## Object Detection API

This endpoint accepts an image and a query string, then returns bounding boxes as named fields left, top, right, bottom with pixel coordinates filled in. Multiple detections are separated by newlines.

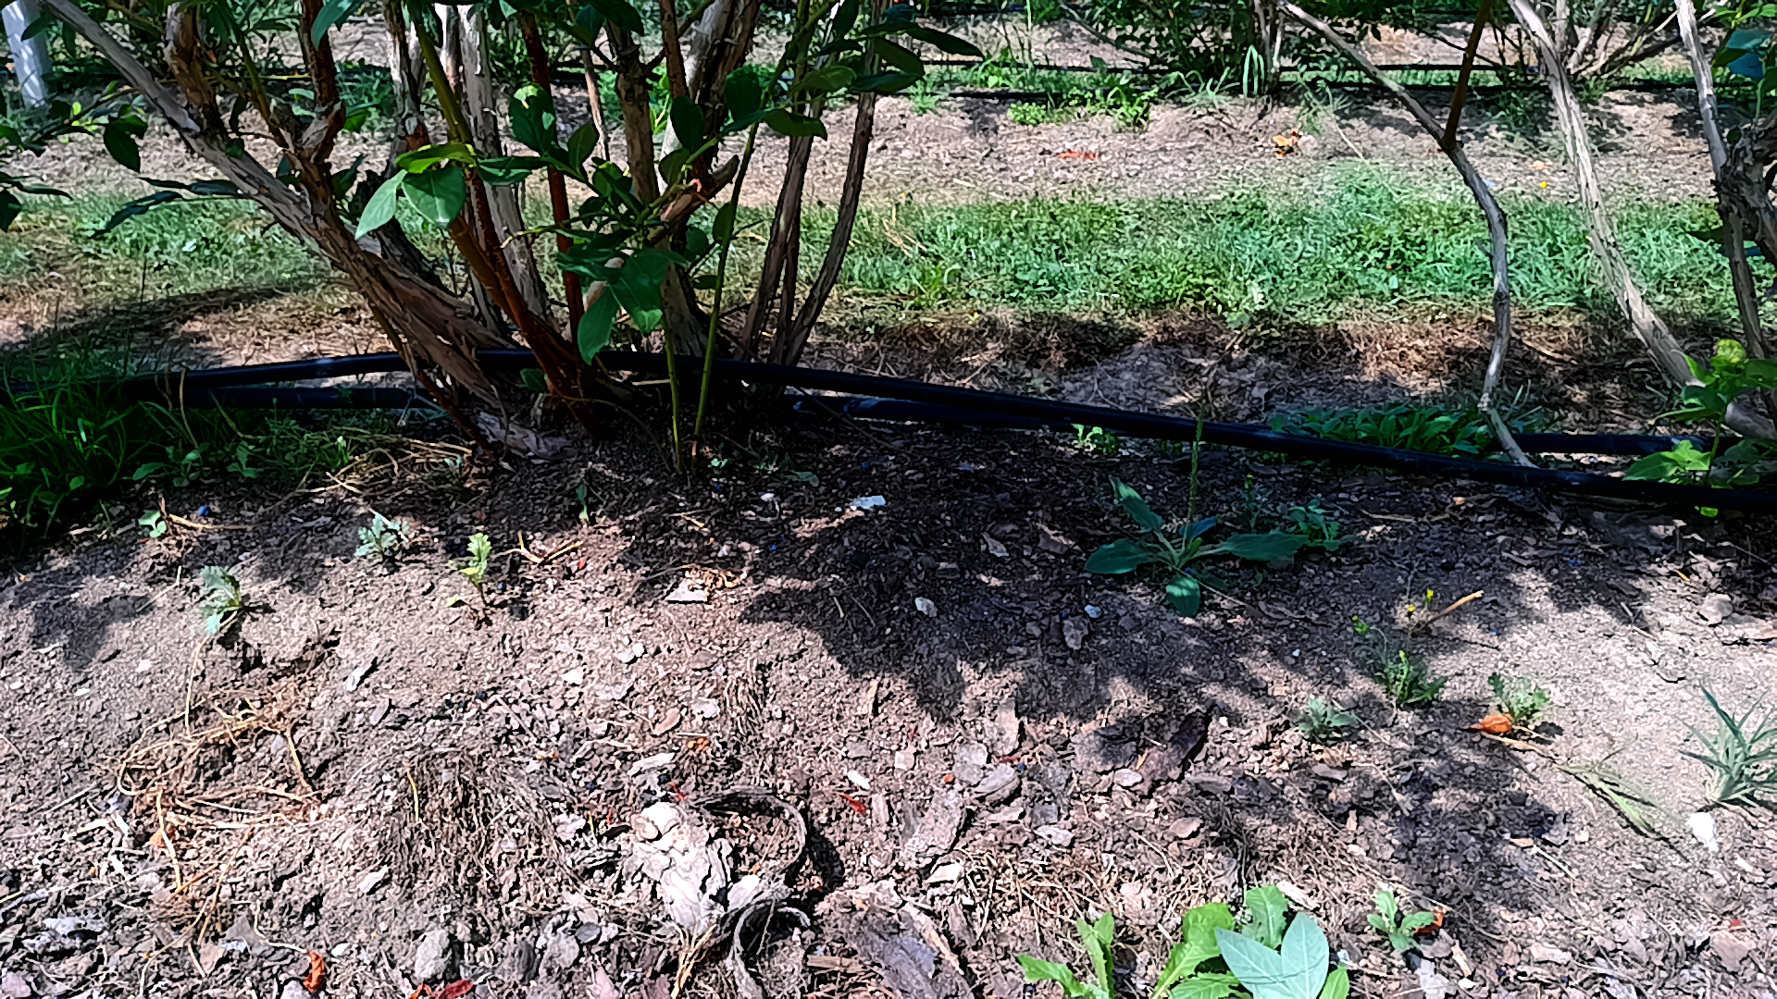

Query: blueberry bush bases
left=304, top=159, right=890, bottom=511
left=1645, top=263, right=1777, bottom=601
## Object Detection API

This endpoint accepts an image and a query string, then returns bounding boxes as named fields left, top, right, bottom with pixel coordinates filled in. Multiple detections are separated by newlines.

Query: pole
left=10, top=19, right=52, bottom=127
